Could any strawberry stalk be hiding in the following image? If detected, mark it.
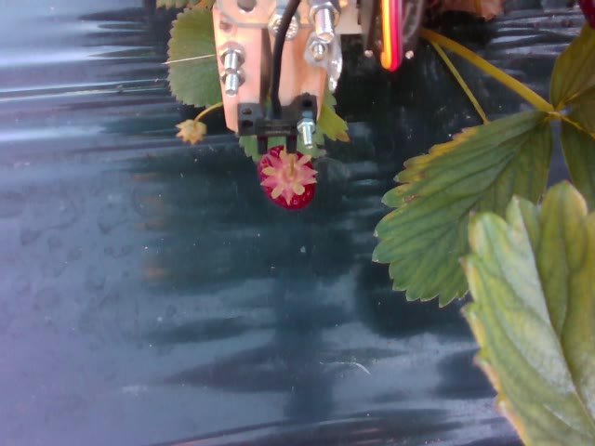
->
[281,139,295,181]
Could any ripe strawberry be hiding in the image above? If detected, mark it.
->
[259,151,318,206]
